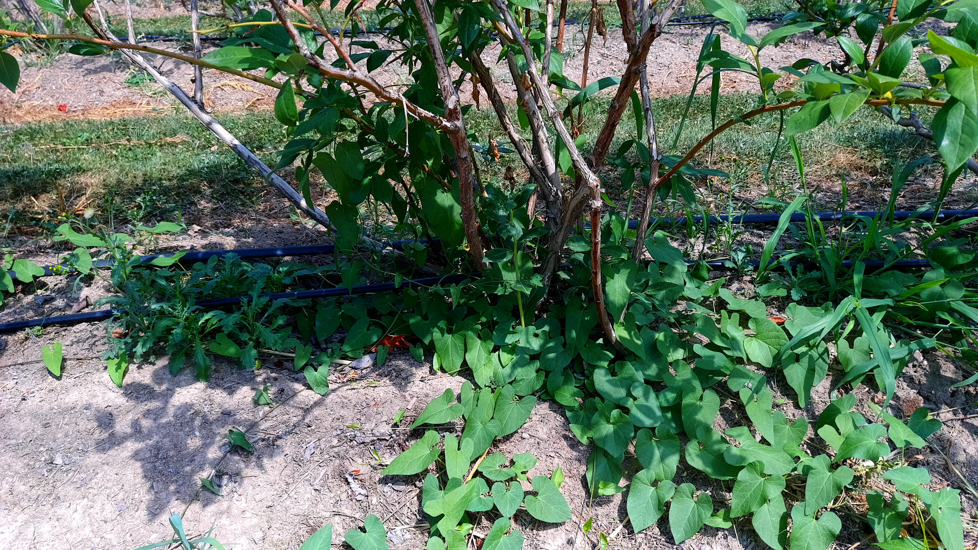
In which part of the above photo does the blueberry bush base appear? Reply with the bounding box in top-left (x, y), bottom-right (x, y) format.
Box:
top-left (382, 157), bottom-right (659, 377)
